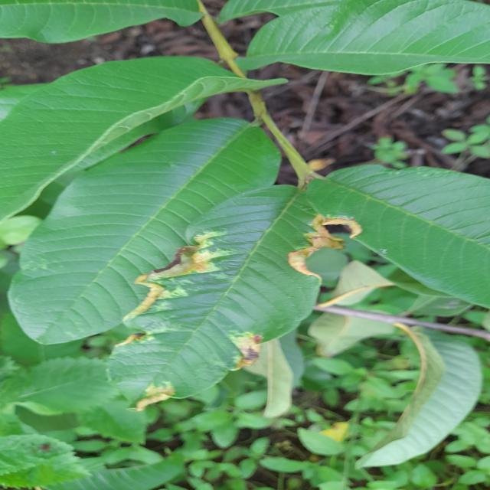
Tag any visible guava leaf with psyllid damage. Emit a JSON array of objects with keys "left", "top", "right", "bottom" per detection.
[{"left": 66, "top": 188, "right": 333, "bottom": 412}]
